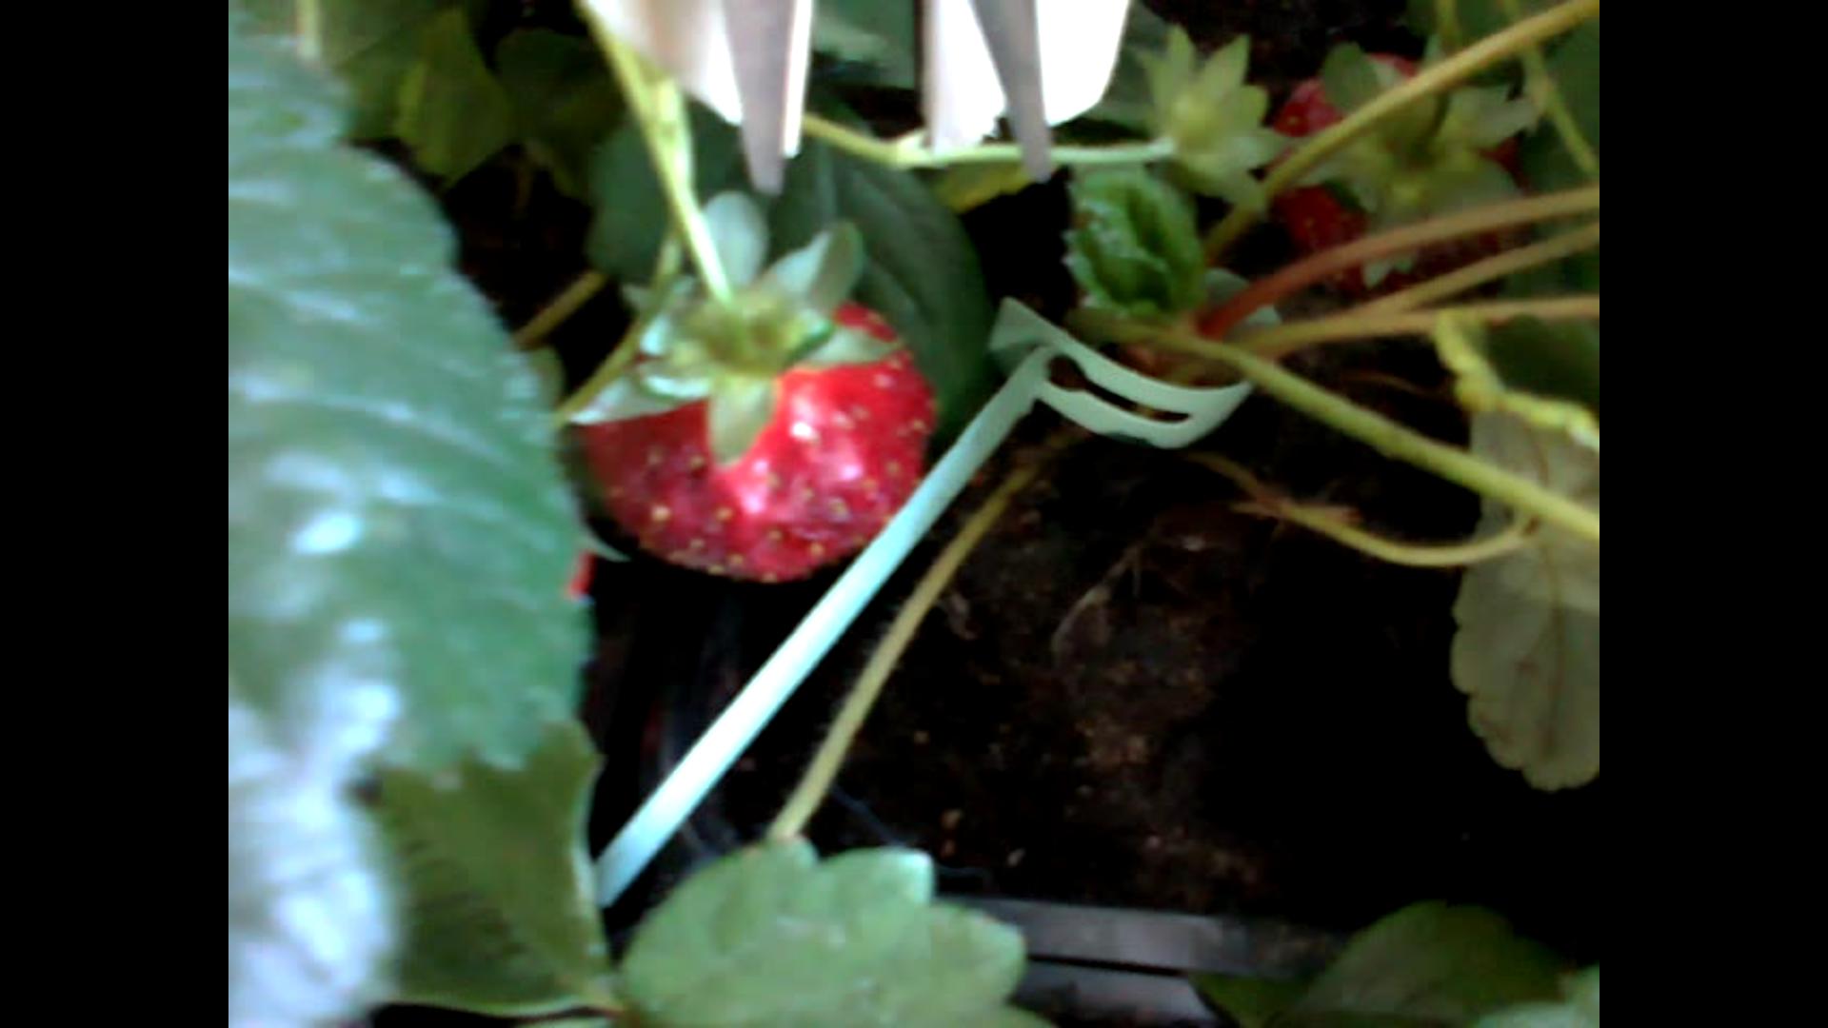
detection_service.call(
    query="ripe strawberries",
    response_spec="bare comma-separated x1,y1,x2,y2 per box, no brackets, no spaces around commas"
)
526,278,948,605
1267,46,1516,303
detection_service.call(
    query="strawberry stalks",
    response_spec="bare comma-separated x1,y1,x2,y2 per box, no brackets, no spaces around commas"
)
1374,20,1500,183
595,44,752,399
